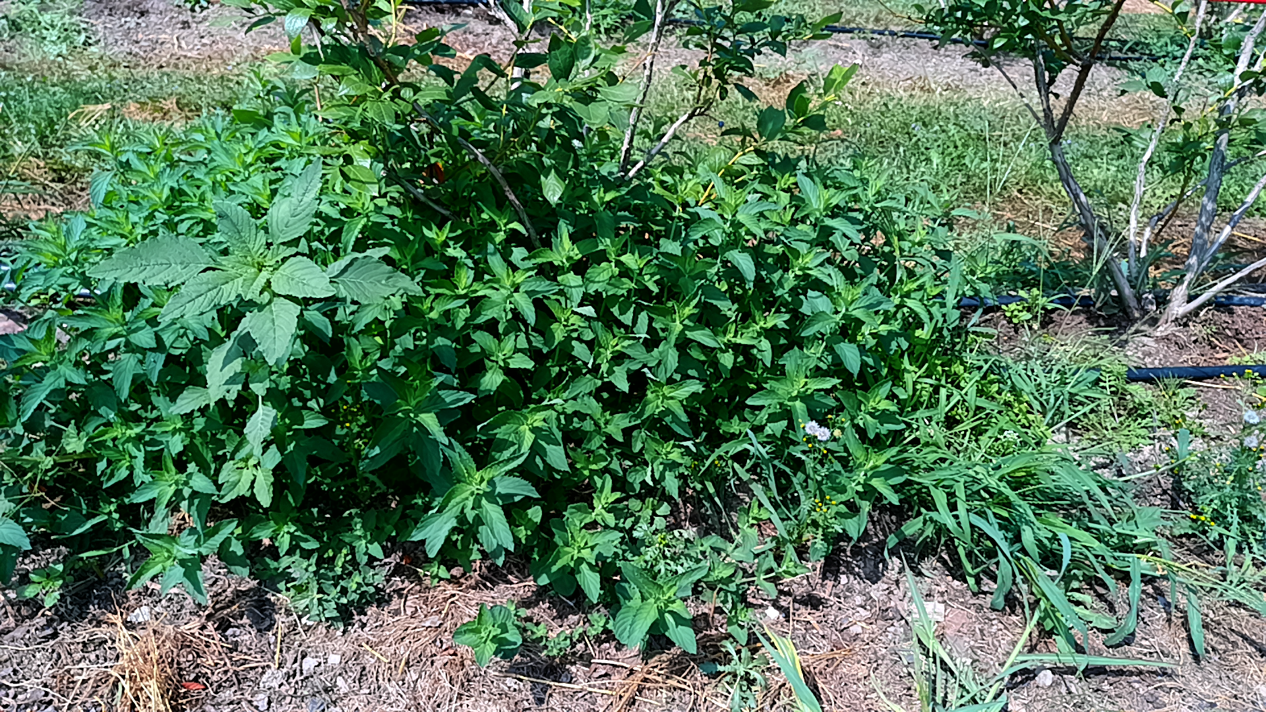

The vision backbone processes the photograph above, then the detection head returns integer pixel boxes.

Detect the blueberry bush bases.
[1029,161,1261,367]
[378,49,731,336]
